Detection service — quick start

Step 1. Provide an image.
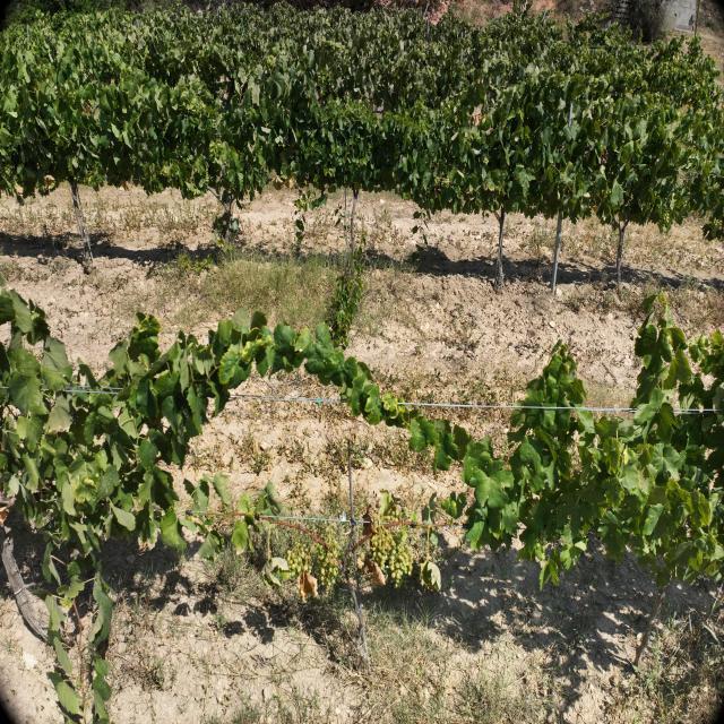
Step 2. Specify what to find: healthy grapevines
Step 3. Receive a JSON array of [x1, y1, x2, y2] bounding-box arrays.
[[0, 312, 378, 724], [381, 305, 724, 686]]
